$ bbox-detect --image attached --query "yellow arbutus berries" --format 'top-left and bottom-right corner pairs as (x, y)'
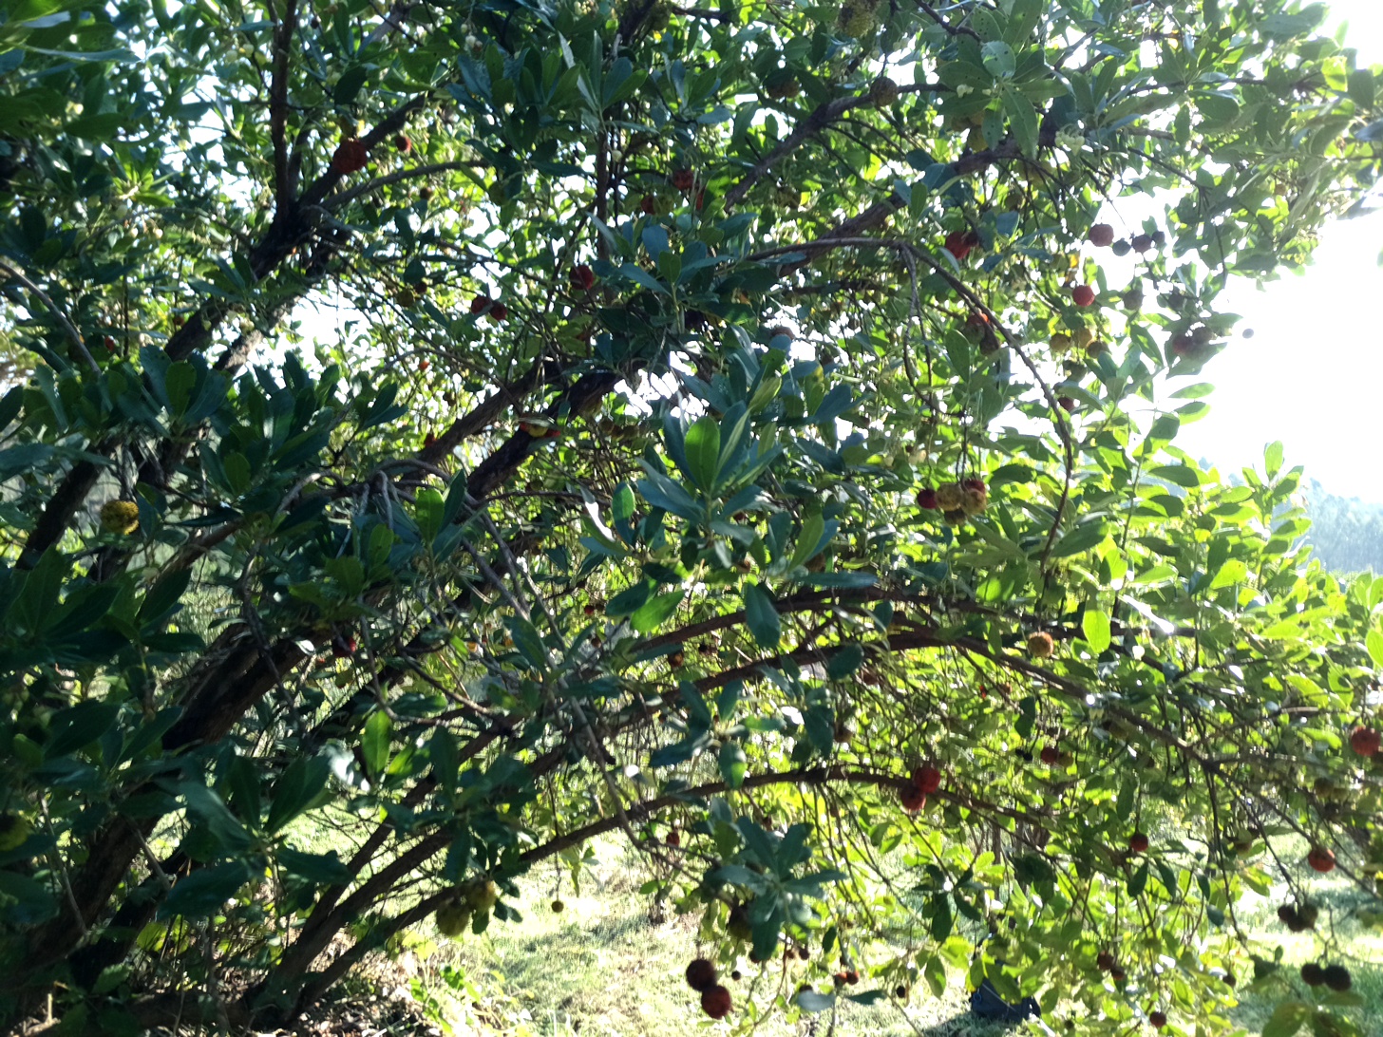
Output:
(466, 880), (496, 909)
(944, 507), (967, 527)
(100, 498), (141, 535)
(1073, 327), (1093, 345)
(1087, 340), (1109, 357)
(937, 482), (961, 510)
(1027, 628), (1055, 658)
(1051, 335), (1071, 351)
(959, 489), (991, 519)
(529, 417), (548, 439)
(1192, 325), (1213, 345)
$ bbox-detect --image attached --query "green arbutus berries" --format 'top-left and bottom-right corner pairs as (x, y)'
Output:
(968, 109), (987, 125)
(869, 77), (897, 105)
(435, 901), (470, 936)
(397, 289), (414, 307)
(837, 1), (881, 40)
(950, 115), (969, 132)
(782, 79), (799, 98)
(1113, 237), (1130, 256)
(962, 325), (985, 343)
(964, 126), (989, 152)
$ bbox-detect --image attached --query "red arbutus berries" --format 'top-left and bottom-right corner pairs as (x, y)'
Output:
(568, 263), (593, 289)
(845, 971), (860, 985)
(685, 958), (717, 987)
(698, 985), (734, 1017)
(330, 140), (367, 174)
(394, 136), (412, 152)
(470, 296), (491, 314)
(1131, 833), (1149, 850)
(1349, 726), (1380, 757)
(946, 232), (973, 259)
(1041, 747), (1058, 764)
(673, 168), (696, 190)
(332, 635), (358, 657)
(547, 427), (561, 439)
(1131, 234), (1152, 254)
(836, 972), (847, 984)
(902, 787), (927, 810)
(916, 489), (938, 508)
(1150, 1011), (1168, 1027)
(1309, 845), (1335, 872)
(1086, 222), (1114, 247)
(1072, 286), (1094, 305)
(492, 302), (509, 319)
(665, 832), (680, 845)
(1172, 335), (1191, 355)
(962, 474), (986, 494)
(909, 766), (941, 793)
